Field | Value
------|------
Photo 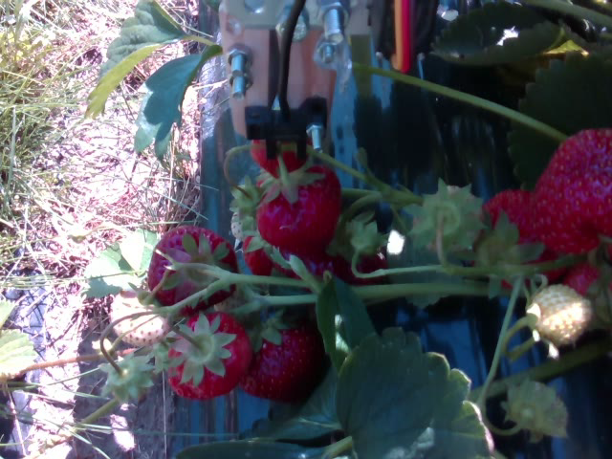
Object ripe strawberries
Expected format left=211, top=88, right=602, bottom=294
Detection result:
left=244, top=137, right=324, bottom=173
left=248, top=168, right=348, bottom=265
left=232, top=311, right=338, bottom=405
left=535, top=122, right=610, bottom=239
left=139, top=221, right=243, bottom=306
left=154, top=319, right=252, bottom=411
left=475, top=192, right=573, bottom=277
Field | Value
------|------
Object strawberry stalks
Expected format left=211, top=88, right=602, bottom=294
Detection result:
left=175, top=307, right=217, bottom=363
left=269, top=157, right=302, bottom=200
left=173, top=255, right=234, bottom=283
left=476, top=226, right=519, bottom=295
left=429, top=207, right=453, bottom=258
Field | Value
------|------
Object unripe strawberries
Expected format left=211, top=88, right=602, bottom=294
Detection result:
left=525, top=284, right=597, bottom=346
left=405, top=183, right=478, bottom=254
left=99, top=277, right=176, bottom=348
